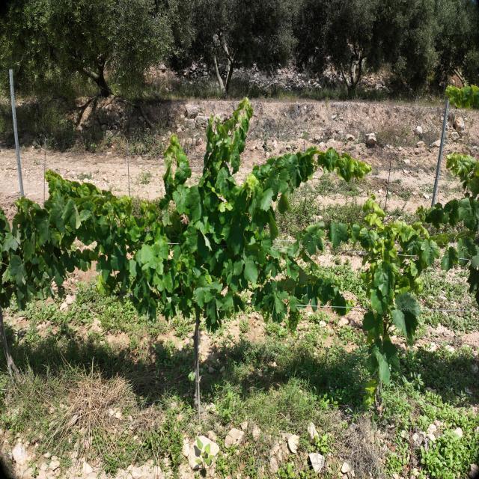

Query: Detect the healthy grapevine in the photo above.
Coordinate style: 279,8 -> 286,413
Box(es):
9,107 -> 339,418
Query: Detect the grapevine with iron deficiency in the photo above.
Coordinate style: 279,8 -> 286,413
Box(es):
335,188 -> 462,427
